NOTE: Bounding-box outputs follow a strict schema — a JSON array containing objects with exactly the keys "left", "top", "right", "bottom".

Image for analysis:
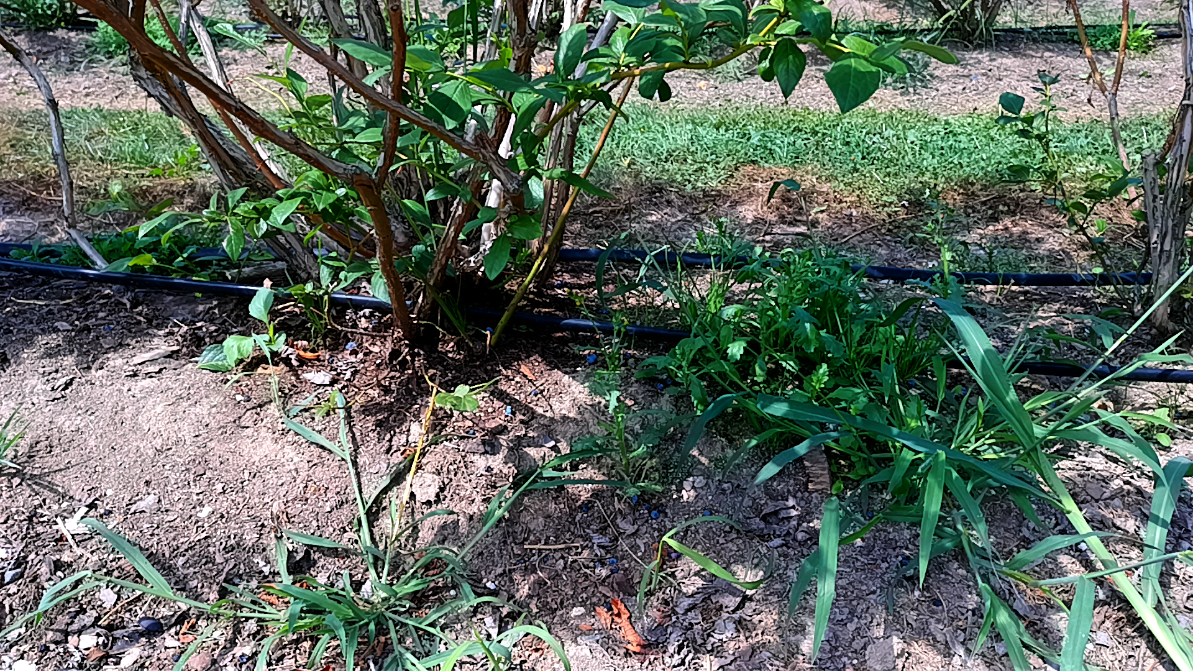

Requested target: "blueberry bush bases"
[
  {"left": 279, "top": 132, "right": 601, "bottom": 396},
  {"left": 922, "top": 0, "right": 1000, "bottom": 54},
  {"left": 1089, "top": 196, "right": 1192, "bottom": 373}
]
